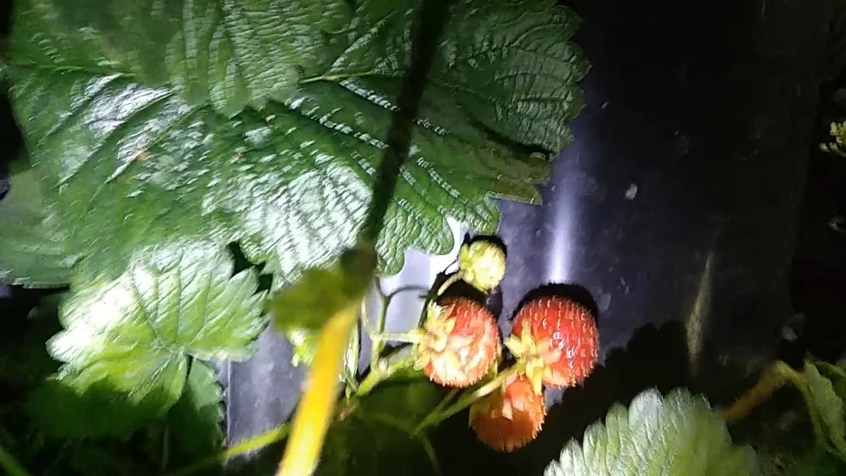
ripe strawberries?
[414,297,502,388]
[507,294,601,388]
[475,384,545,452]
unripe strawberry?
[455,241,516,290]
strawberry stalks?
[430,339,553,428]
[365,321,461,353]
